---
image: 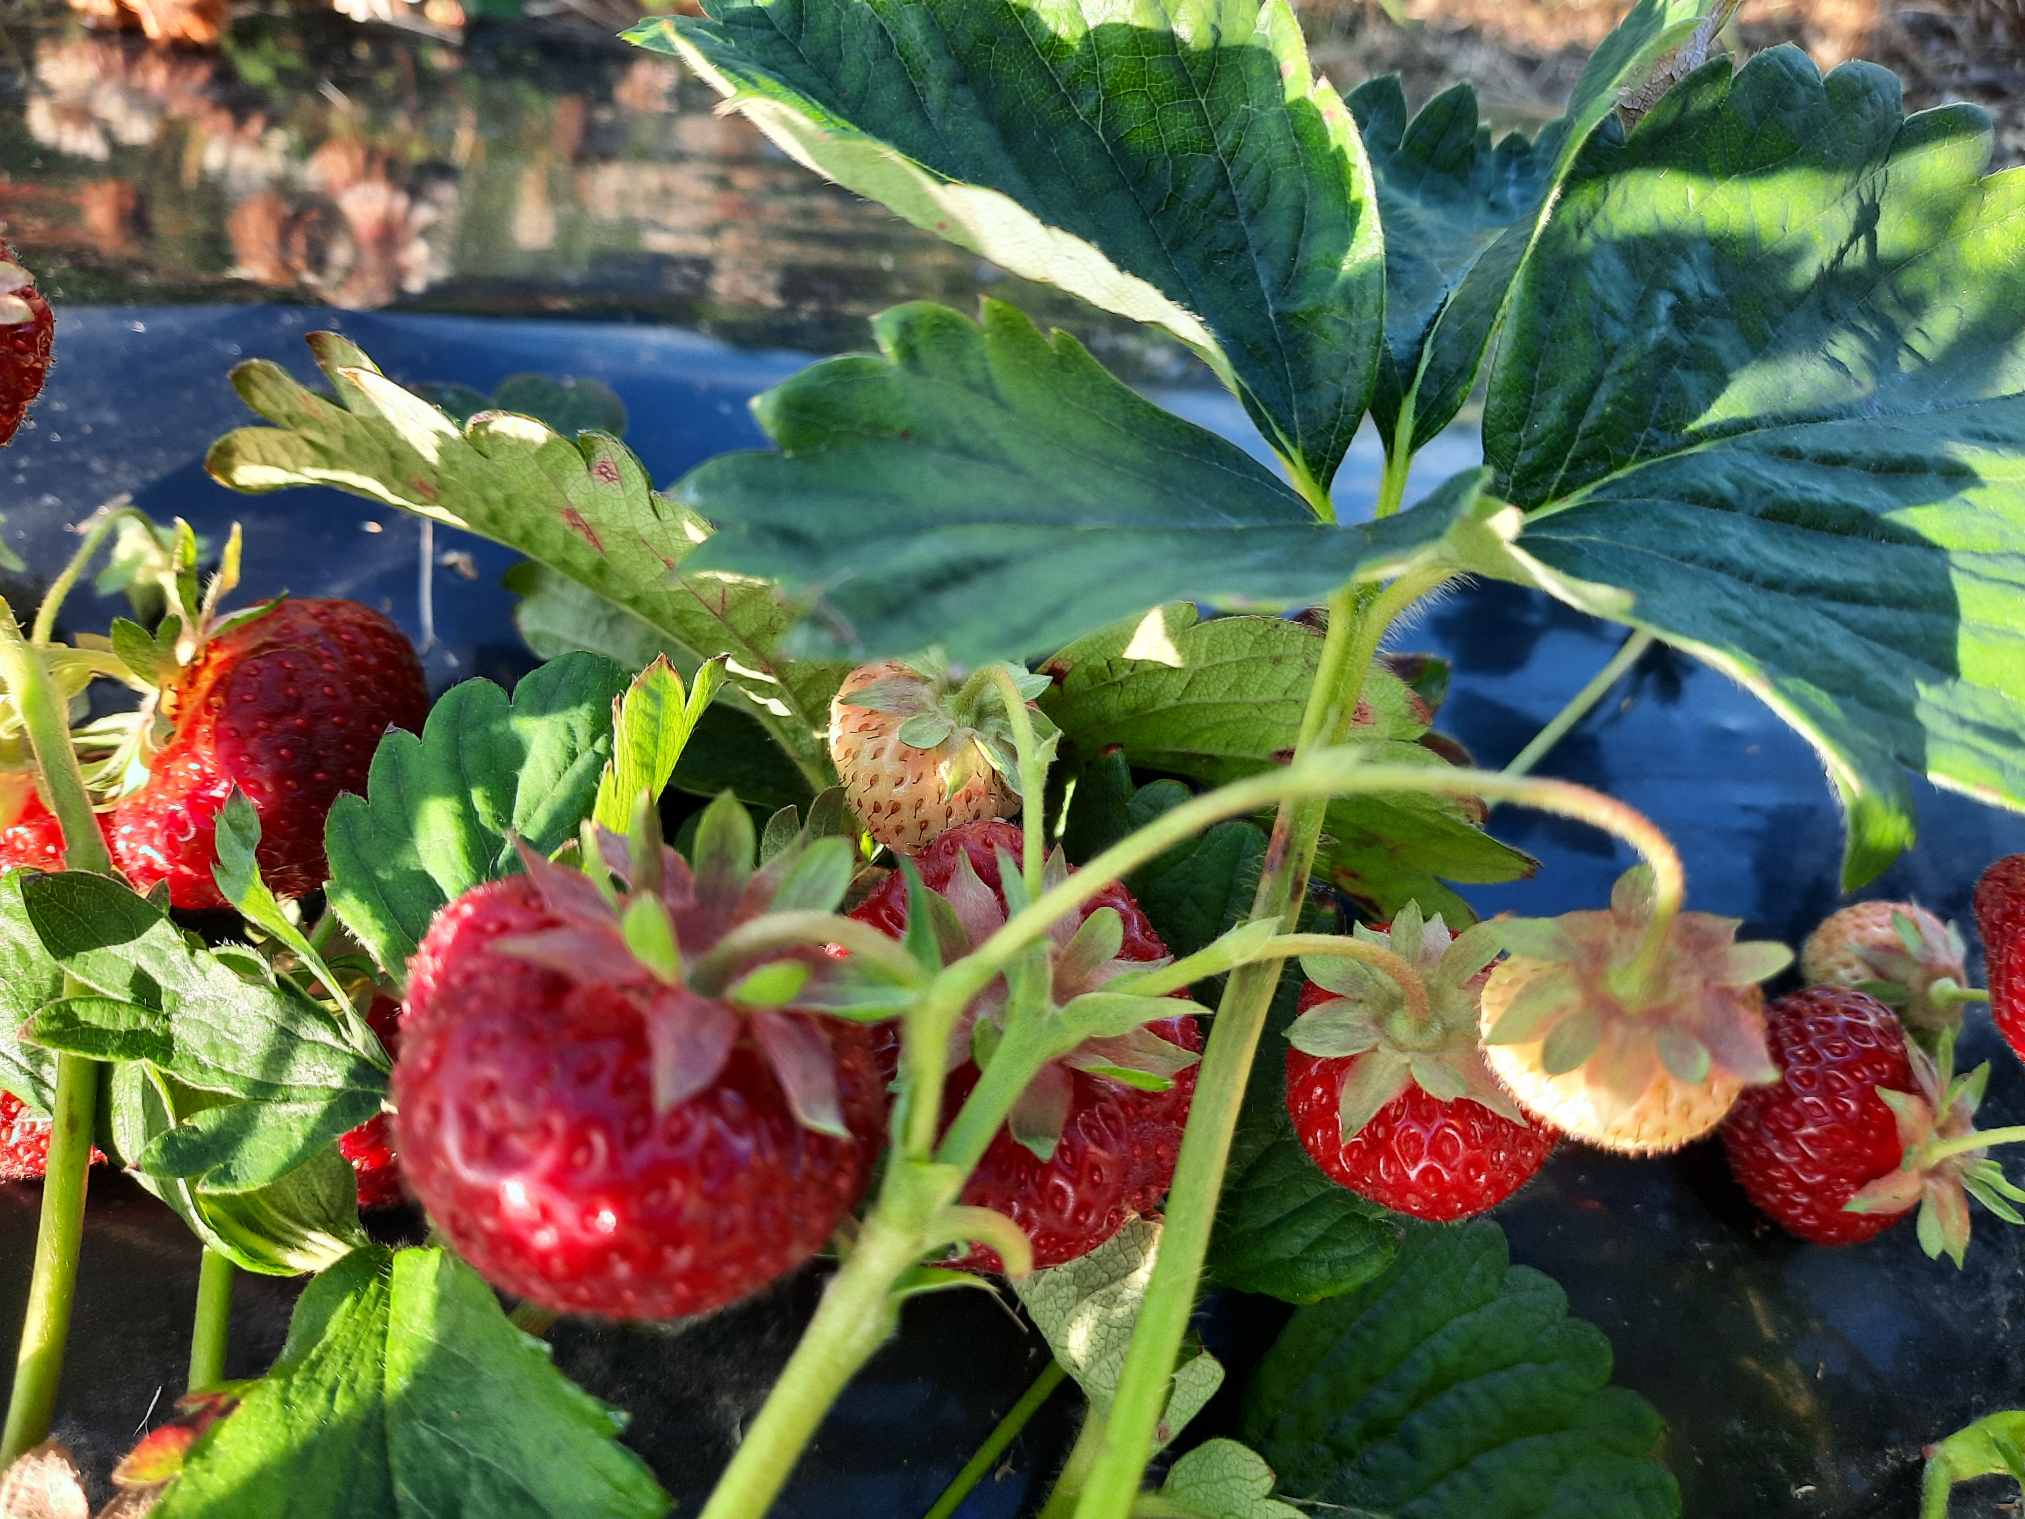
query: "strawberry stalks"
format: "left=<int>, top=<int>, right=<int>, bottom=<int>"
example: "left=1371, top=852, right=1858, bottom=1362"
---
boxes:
left=1863, top=1116, right=2025, bottom=1187
left=1229, top=933, right=1455, bottom=1049
left=953, top=683, right=1046, bottom=709
left=636, top=920, right=915, bottom=1051
left=1496, top=767, right=1671, bottom=972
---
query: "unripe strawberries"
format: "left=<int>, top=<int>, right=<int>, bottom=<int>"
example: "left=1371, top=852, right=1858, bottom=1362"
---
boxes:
left=1820, top=918, right=1979, bottom=1013
left=1488, top=899, right=1770, bottom=1150
left=813, top=674, right=1011, bottom=847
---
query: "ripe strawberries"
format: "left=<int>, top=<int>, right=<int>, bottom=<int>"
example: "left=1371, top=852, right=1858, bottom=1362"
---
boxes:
left=1304, top=954, right=1531, bottom=1217
left=98, top=603, right=434, bottom=901
left=787, top=881, right=1192, bottom=1276
left=414, top=883, right=826, bottom=1323
left=1718, top=995, right=1930, bottom=1217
